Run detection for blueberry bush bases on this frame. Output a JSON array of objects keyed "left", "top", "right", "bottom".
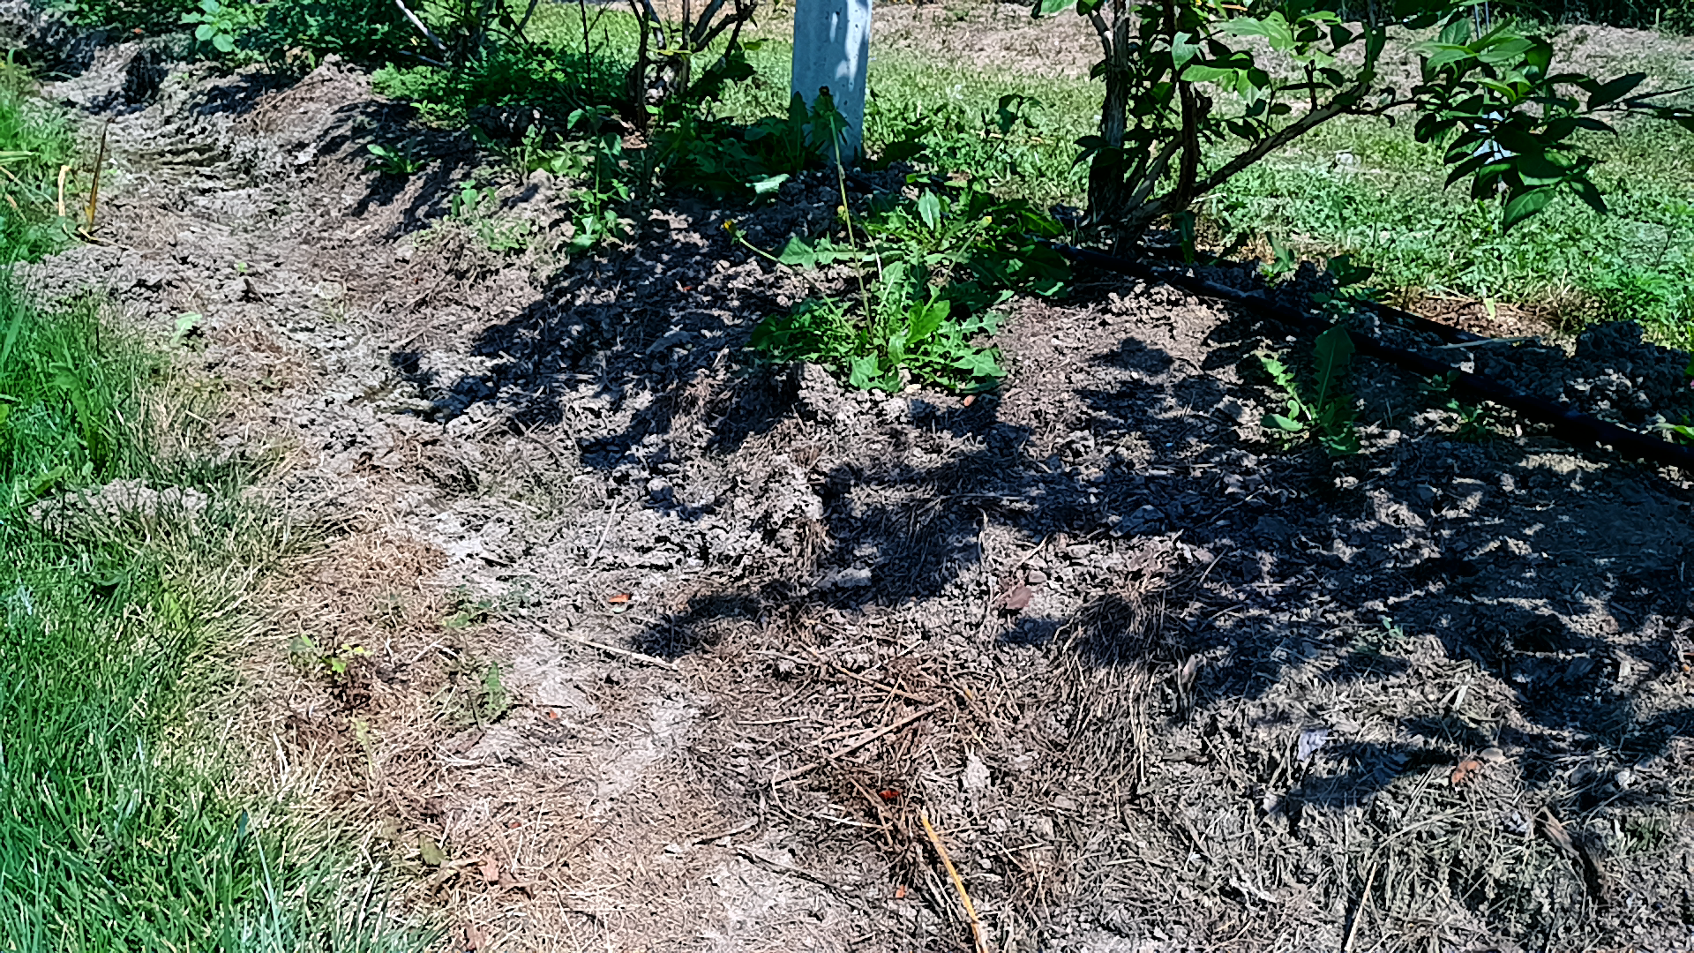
[
  {"left": 1028, "top": 62, "right": 1233, "bottom": 294},
  {"left": 346, "top": 1, "right": 509, "bottom": 110},
  {"left": 580, "top": 1, "right": 734, "bottom": 175}
]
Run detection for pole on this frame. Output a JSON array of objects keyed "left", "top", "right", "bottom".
[{"left": 769, "top": 1, "right": 889, "bottom": 184}]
